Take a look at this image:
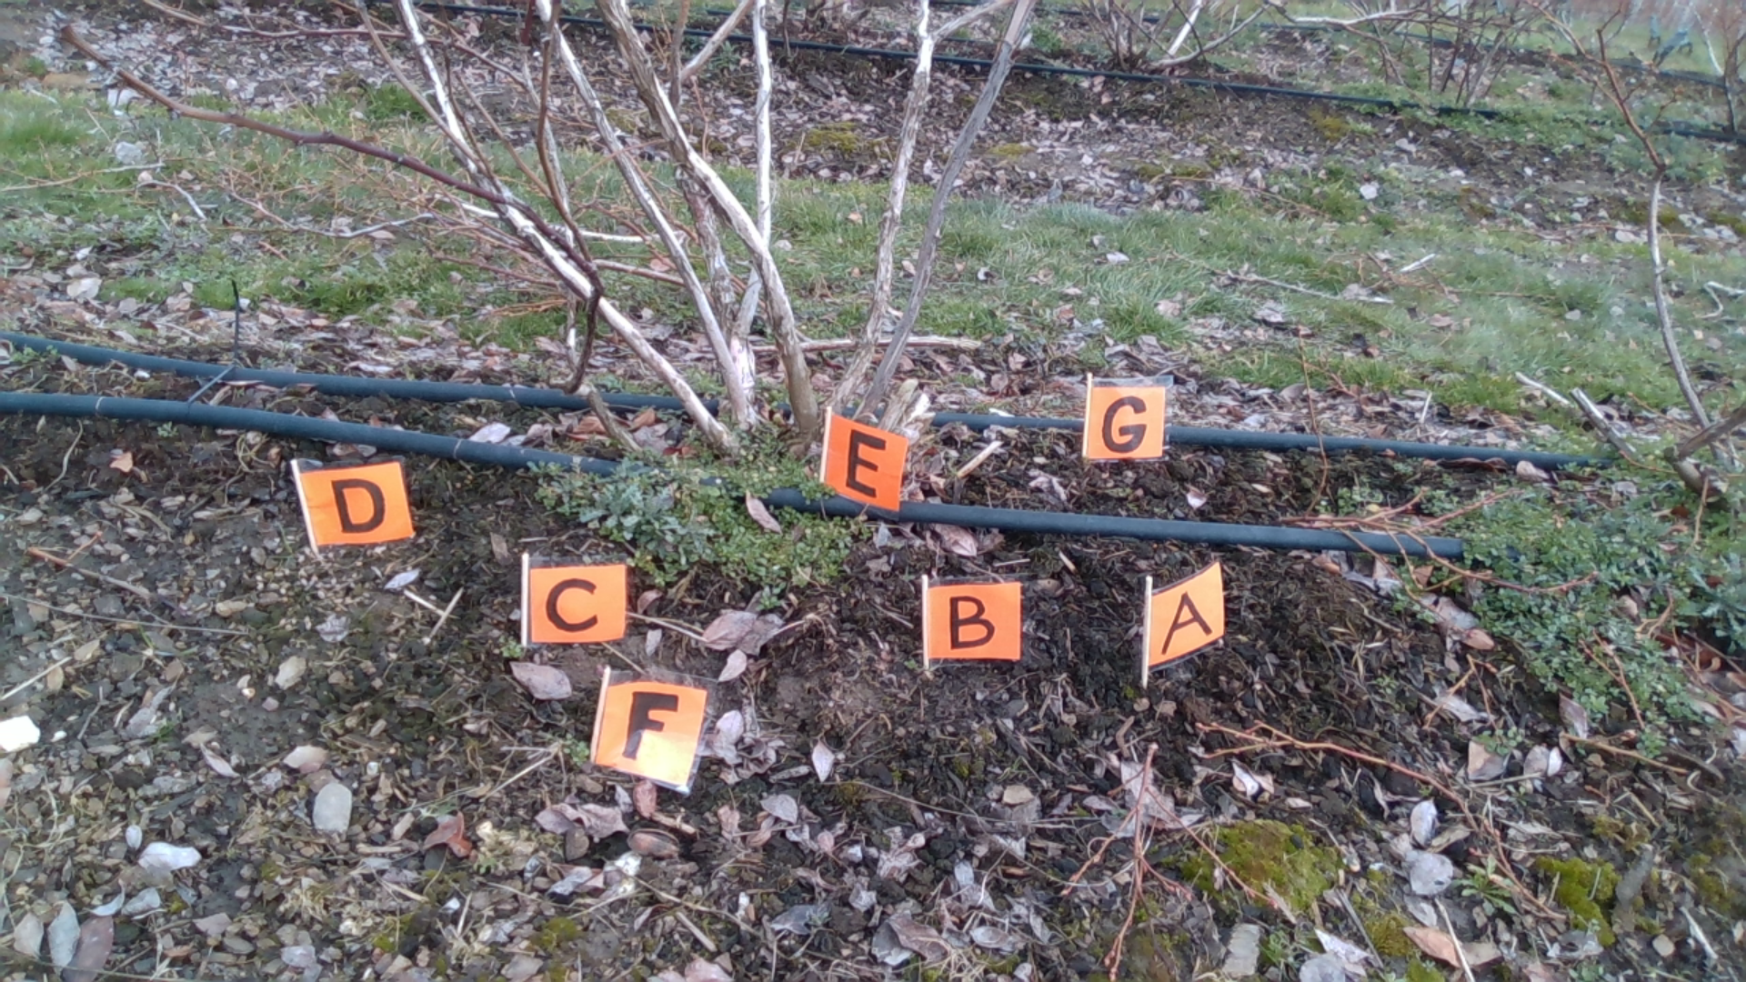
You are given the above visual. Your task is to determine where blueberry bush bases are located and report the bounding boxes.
[599,282,993,582]
[1079,15,1174,87]
[1369,53,1508,145]
[1613,373,1746,567]
[743,0,870,61]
